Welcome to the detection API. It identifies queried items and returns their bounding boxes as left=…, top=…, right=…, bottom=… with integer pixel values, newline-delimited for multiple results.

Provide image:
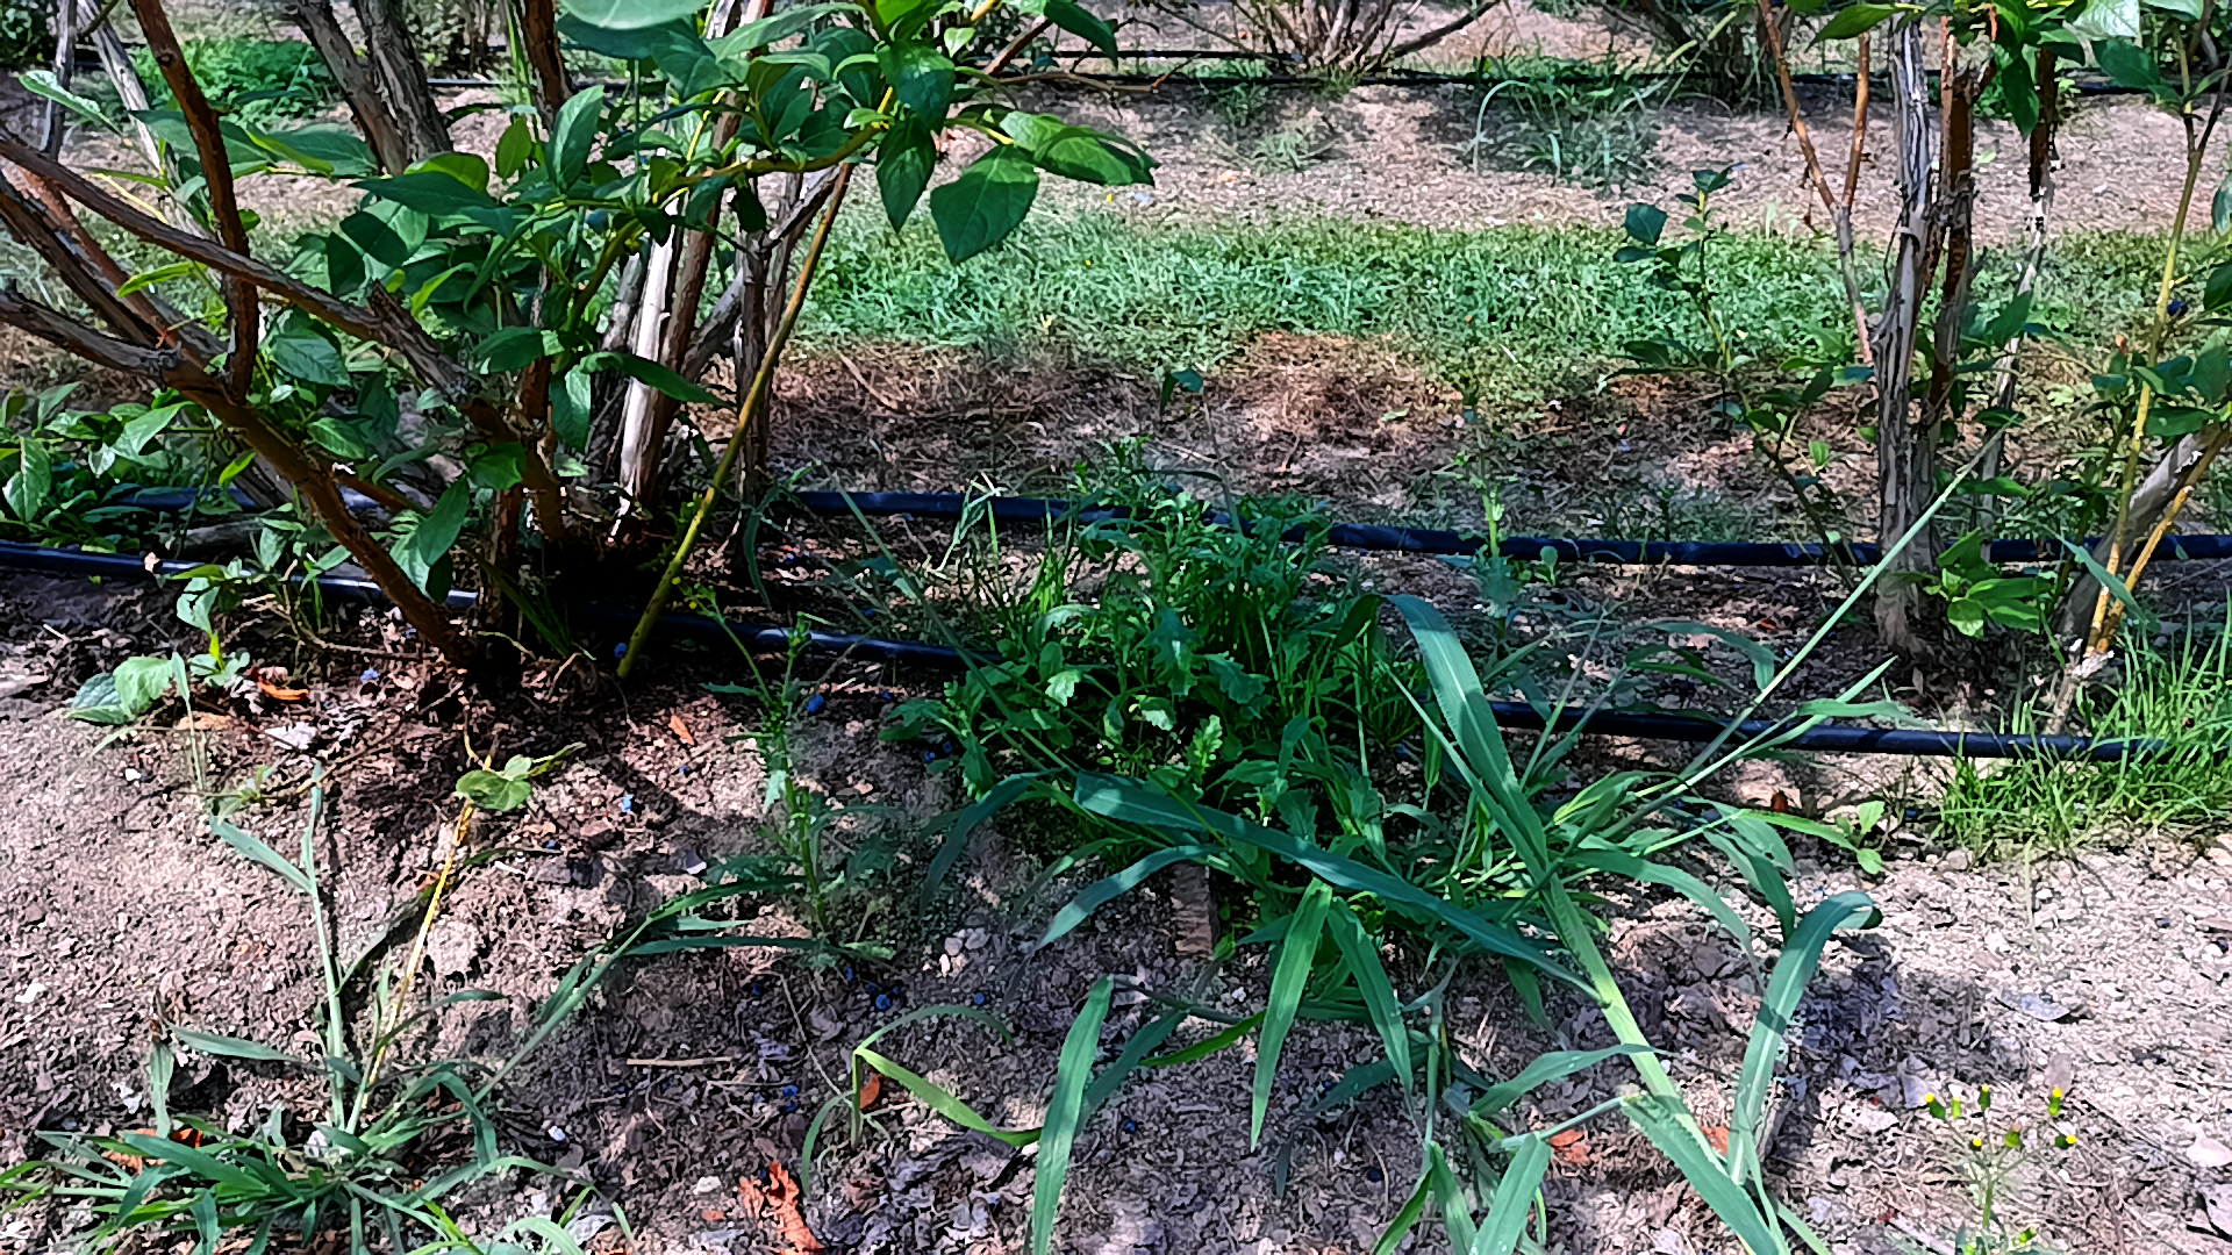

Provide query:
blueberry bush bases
left=1226, top=7, right=1411, bottom=108
left=150, top=175, right=861, bottom=795
left=1773, top=431, right=2190, bottom=844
